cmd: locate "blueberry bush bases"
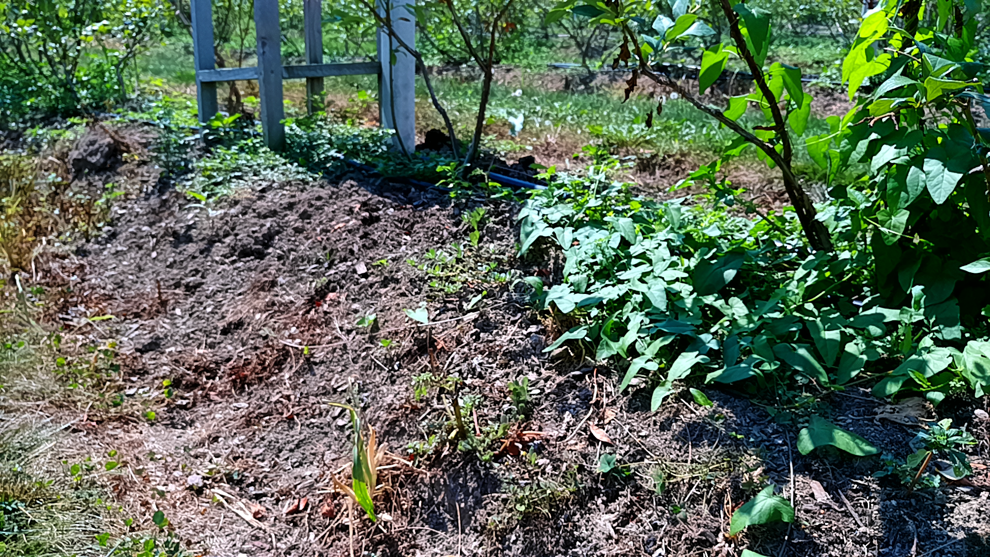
[1,9,142,130]
[692,132,989,402]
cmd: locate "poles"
[244,1,292,158]
[298,1,334,139]
[185,0,227,148]
[368,0,427,167]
